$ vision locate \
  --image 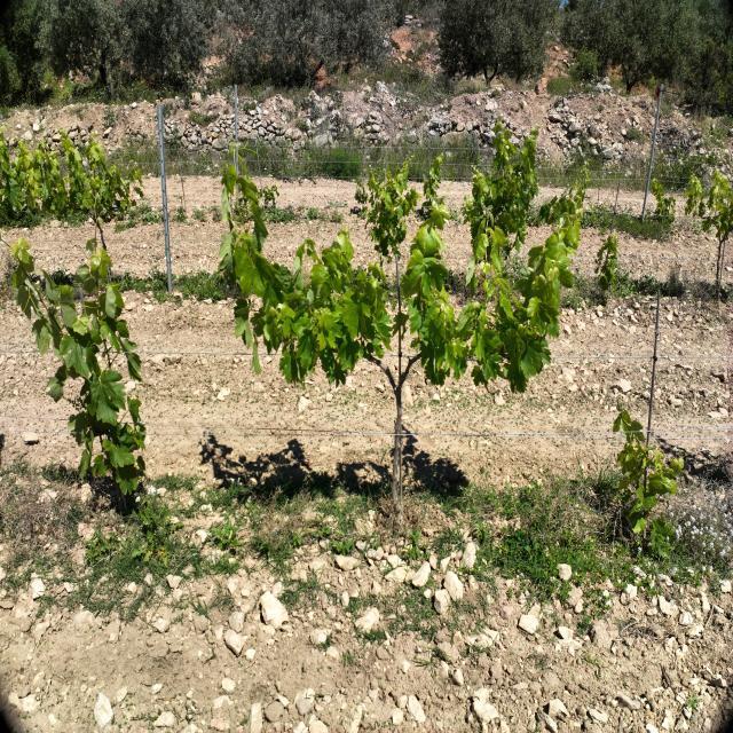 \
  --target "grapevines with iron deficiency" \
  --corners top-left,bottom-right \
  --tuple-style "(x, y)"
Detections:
(214, 199), (592, 545)
(6, 231), (168, 528)
(606, 391), (688, 567)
